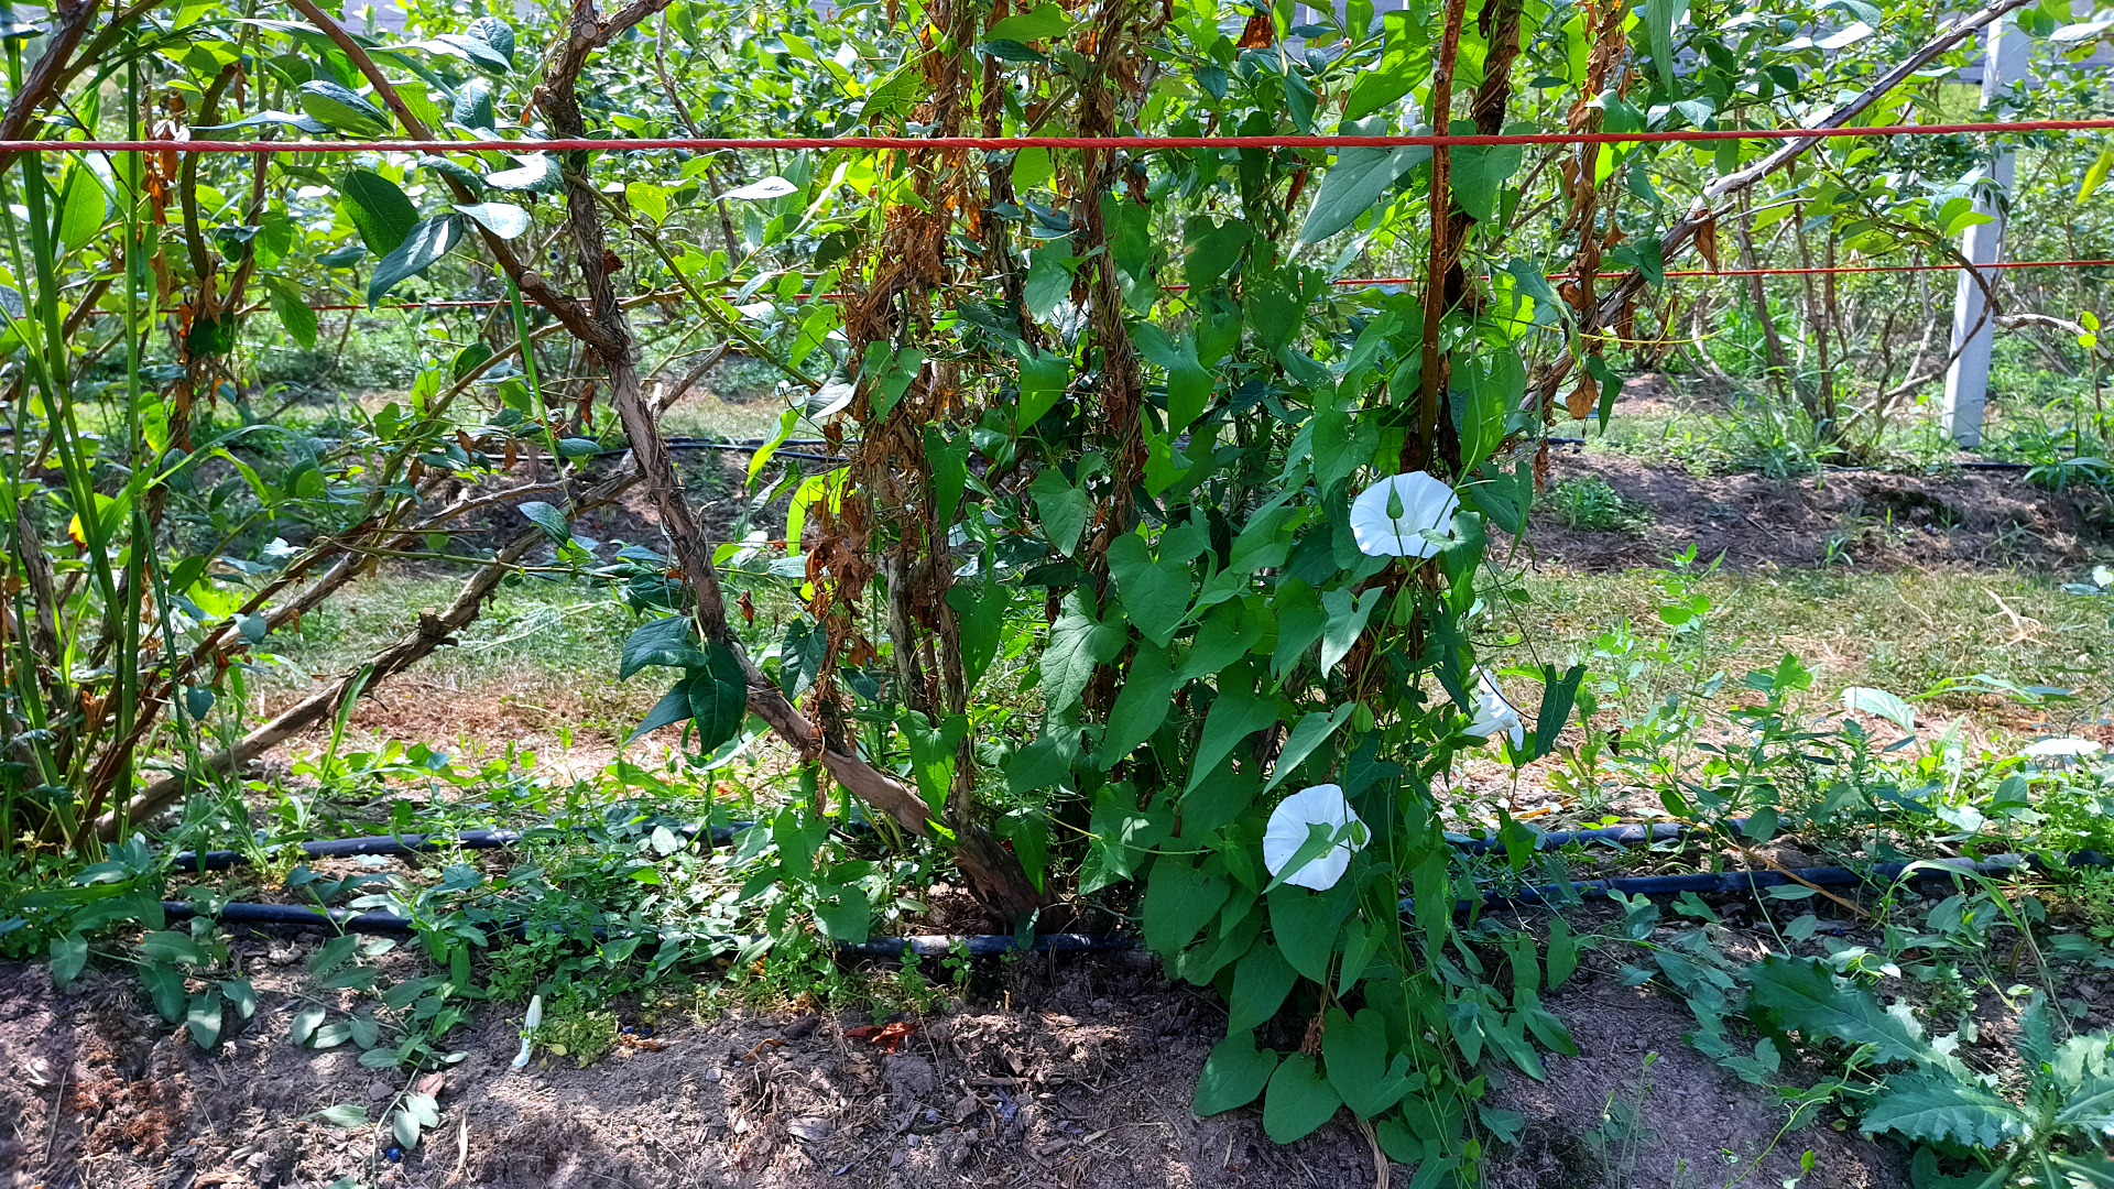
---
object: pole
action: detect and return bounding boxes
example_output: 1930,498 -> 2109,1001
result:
1938,16 -> 2018,447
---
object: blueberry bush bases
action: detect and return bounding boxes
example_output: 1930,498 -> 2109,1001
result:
697,560 -> 1552,1027
1737,353 -> 1927,505
0,660 -> 308,984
